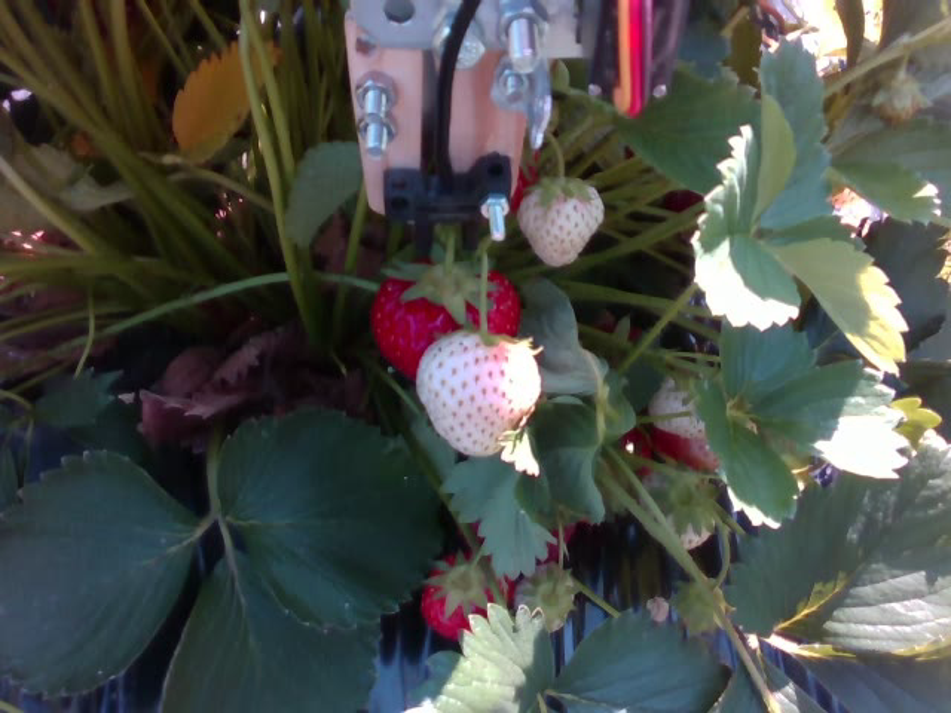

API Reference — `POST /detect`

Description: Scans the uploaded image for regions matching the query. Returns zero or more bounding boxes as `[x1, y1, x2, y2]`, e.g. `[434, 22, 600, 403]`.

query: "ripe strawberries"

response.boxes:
[374, 270, 525, 370]
[427, 552, 513, 639]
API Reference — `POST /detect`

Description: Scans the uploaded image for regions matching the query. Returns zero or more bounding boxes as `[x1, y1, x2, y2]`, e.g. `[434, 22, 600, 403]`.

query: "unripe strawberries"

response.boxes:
[653, 373, 727, 439]
[522, 174, 602, 268]
[415, 327, 554, 455]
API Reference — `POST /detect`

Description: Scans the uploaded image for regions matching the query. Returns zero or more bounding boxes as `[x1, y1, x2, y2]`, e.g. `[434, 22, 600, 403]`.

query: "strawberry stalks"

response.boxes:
[442, 519, 518, 605]
[421, 211, 467, 309]
[471, 243, 498, 375]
